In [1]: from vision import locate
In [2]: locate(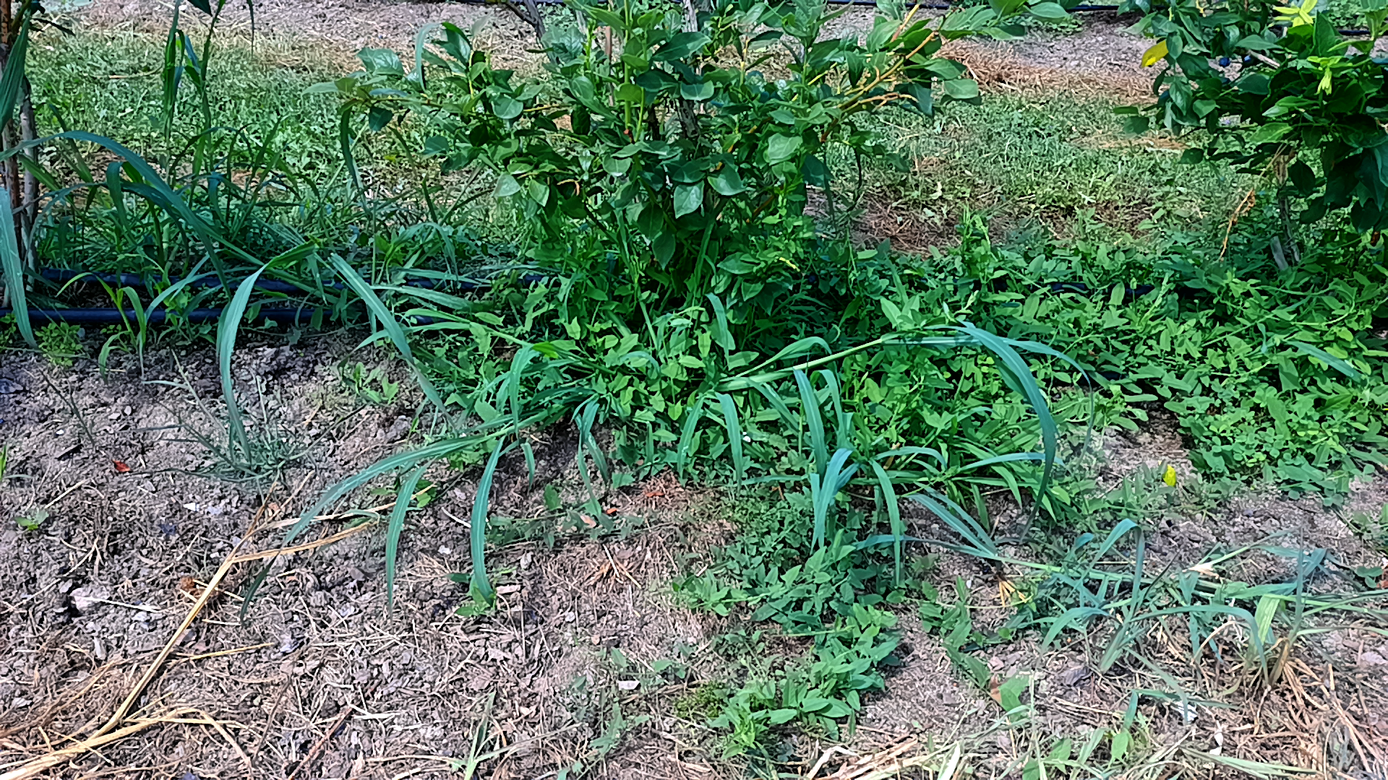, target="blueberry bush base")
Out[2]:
[542,68,826,397]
